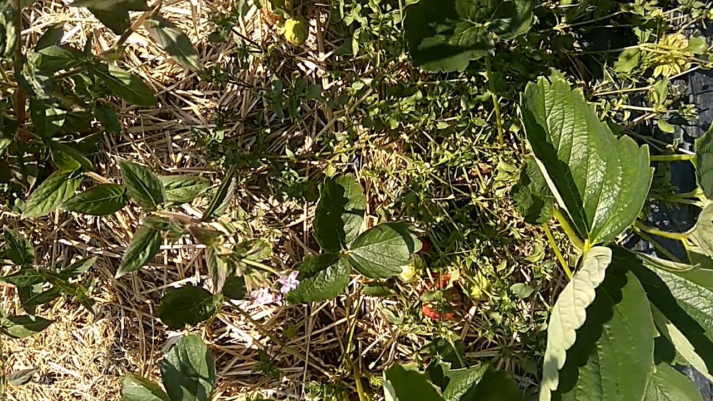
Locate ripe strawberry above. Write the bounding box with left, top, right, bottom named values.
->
left=416, top=277, right=465, bottom=323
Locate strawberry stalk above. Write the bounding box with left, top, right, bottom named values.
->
left=424, top=281, right=451, bottom=312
